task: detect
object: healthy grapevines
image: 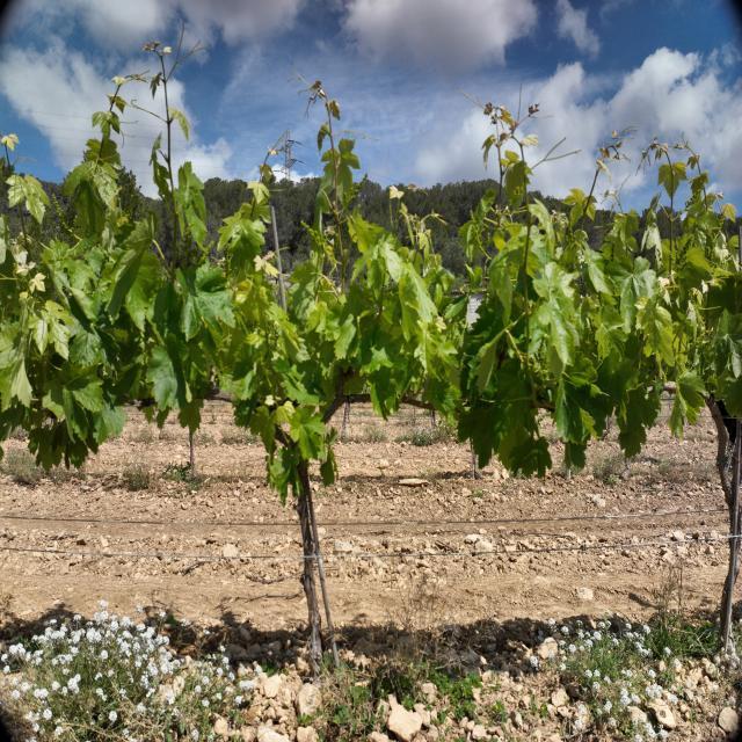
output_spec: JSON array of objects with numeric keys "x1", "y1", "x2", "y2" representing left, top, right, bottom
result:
[
  {"x1": 0, "y1": 150, "x2": 472, "y2": 691},
  {"x1": 475, "y1": 146, "x2": 742, "y2": 679}
]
